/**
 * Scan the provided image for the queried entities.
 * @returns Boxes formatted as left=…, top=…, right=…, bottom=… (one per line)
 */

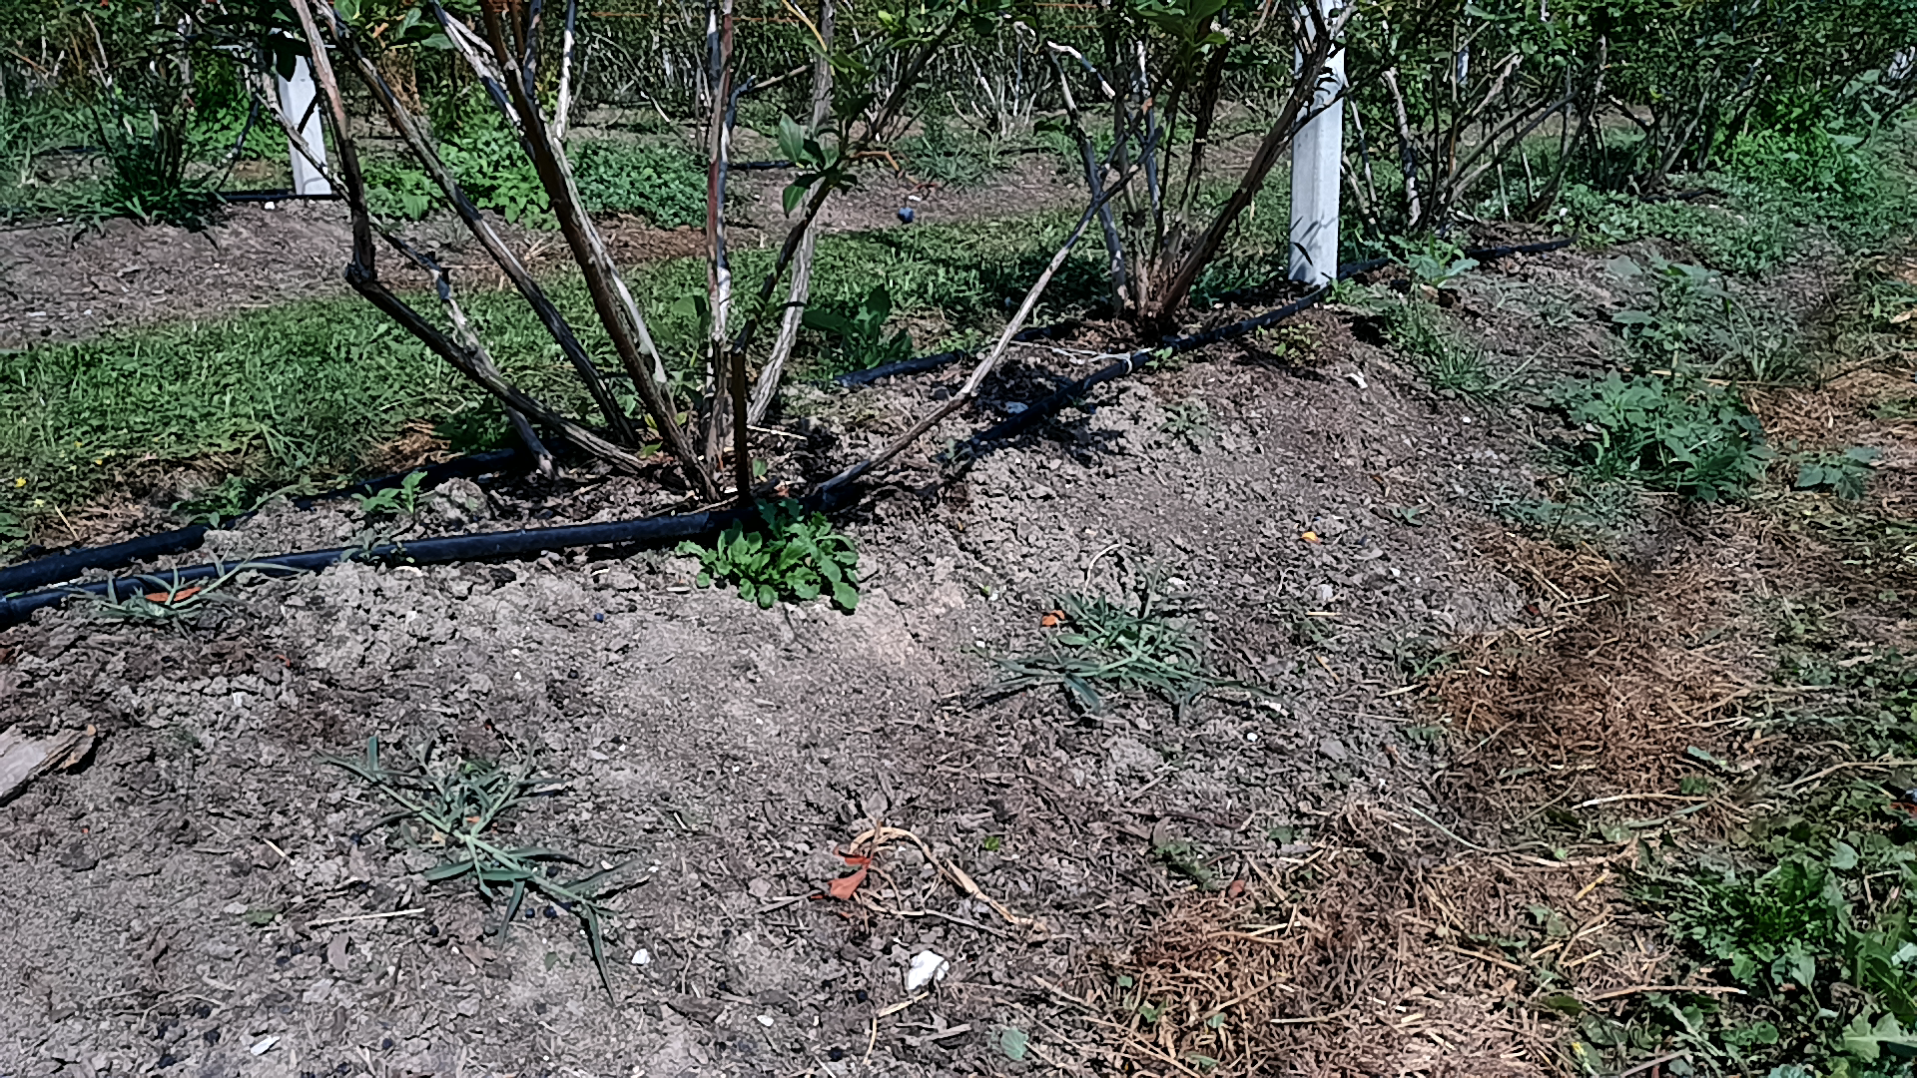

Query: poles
left=1277, top=21, right=1354, bottom=309
left=261, top=15, right=349, bottom=216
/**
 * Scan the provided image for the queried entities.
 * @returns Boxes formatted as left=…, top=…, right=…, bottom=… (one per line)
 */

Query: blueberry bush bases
left=440, top=286, right=930, bottom=575
left=1058, top=189, right=1256, bottom=367
left=964, top=98, right=1053, bottom=151
left=89, top=124, right=223, bottom=231
left=1469, top=164, right=1575, bottom=251
left=1571, top=110, right=1746, bottom=226
left=1349, top=147, right=1513, bottom=276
